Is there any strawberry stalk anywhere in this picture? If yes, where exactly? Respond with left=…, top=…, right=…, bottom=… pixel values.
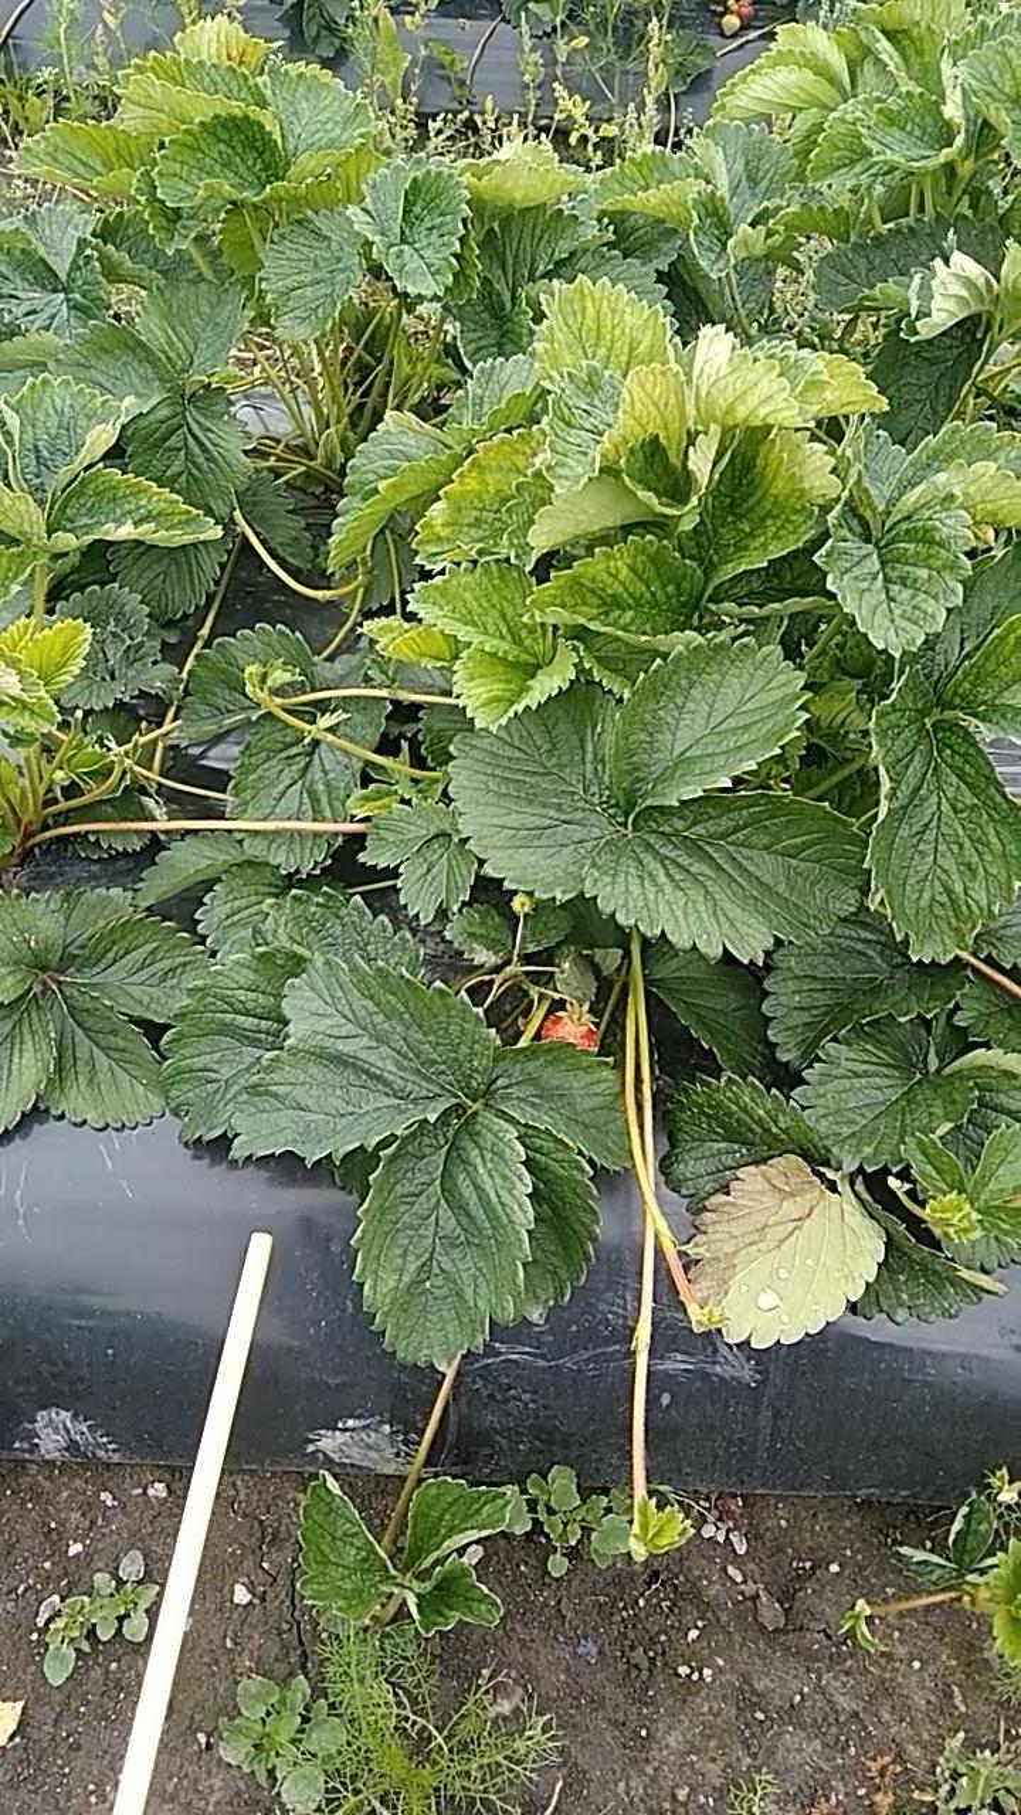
left=518, top=982, right=590, bottom=1016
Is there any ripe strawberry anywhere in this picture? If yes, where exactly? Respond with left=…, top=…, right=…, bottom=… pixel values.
left=540, top=1010, right=602, bottom=1053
